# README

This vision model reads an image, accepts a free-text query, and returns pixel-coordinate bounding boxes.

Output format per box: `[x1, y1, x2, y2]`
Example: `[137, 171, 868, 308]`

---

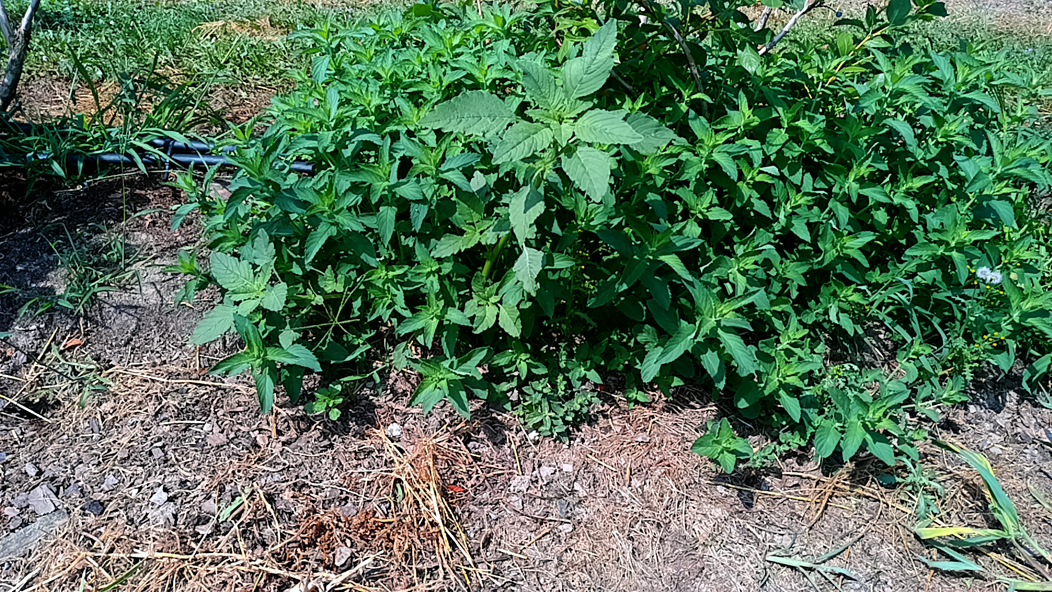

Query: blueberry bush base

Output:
[629, 10, 819, 152]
